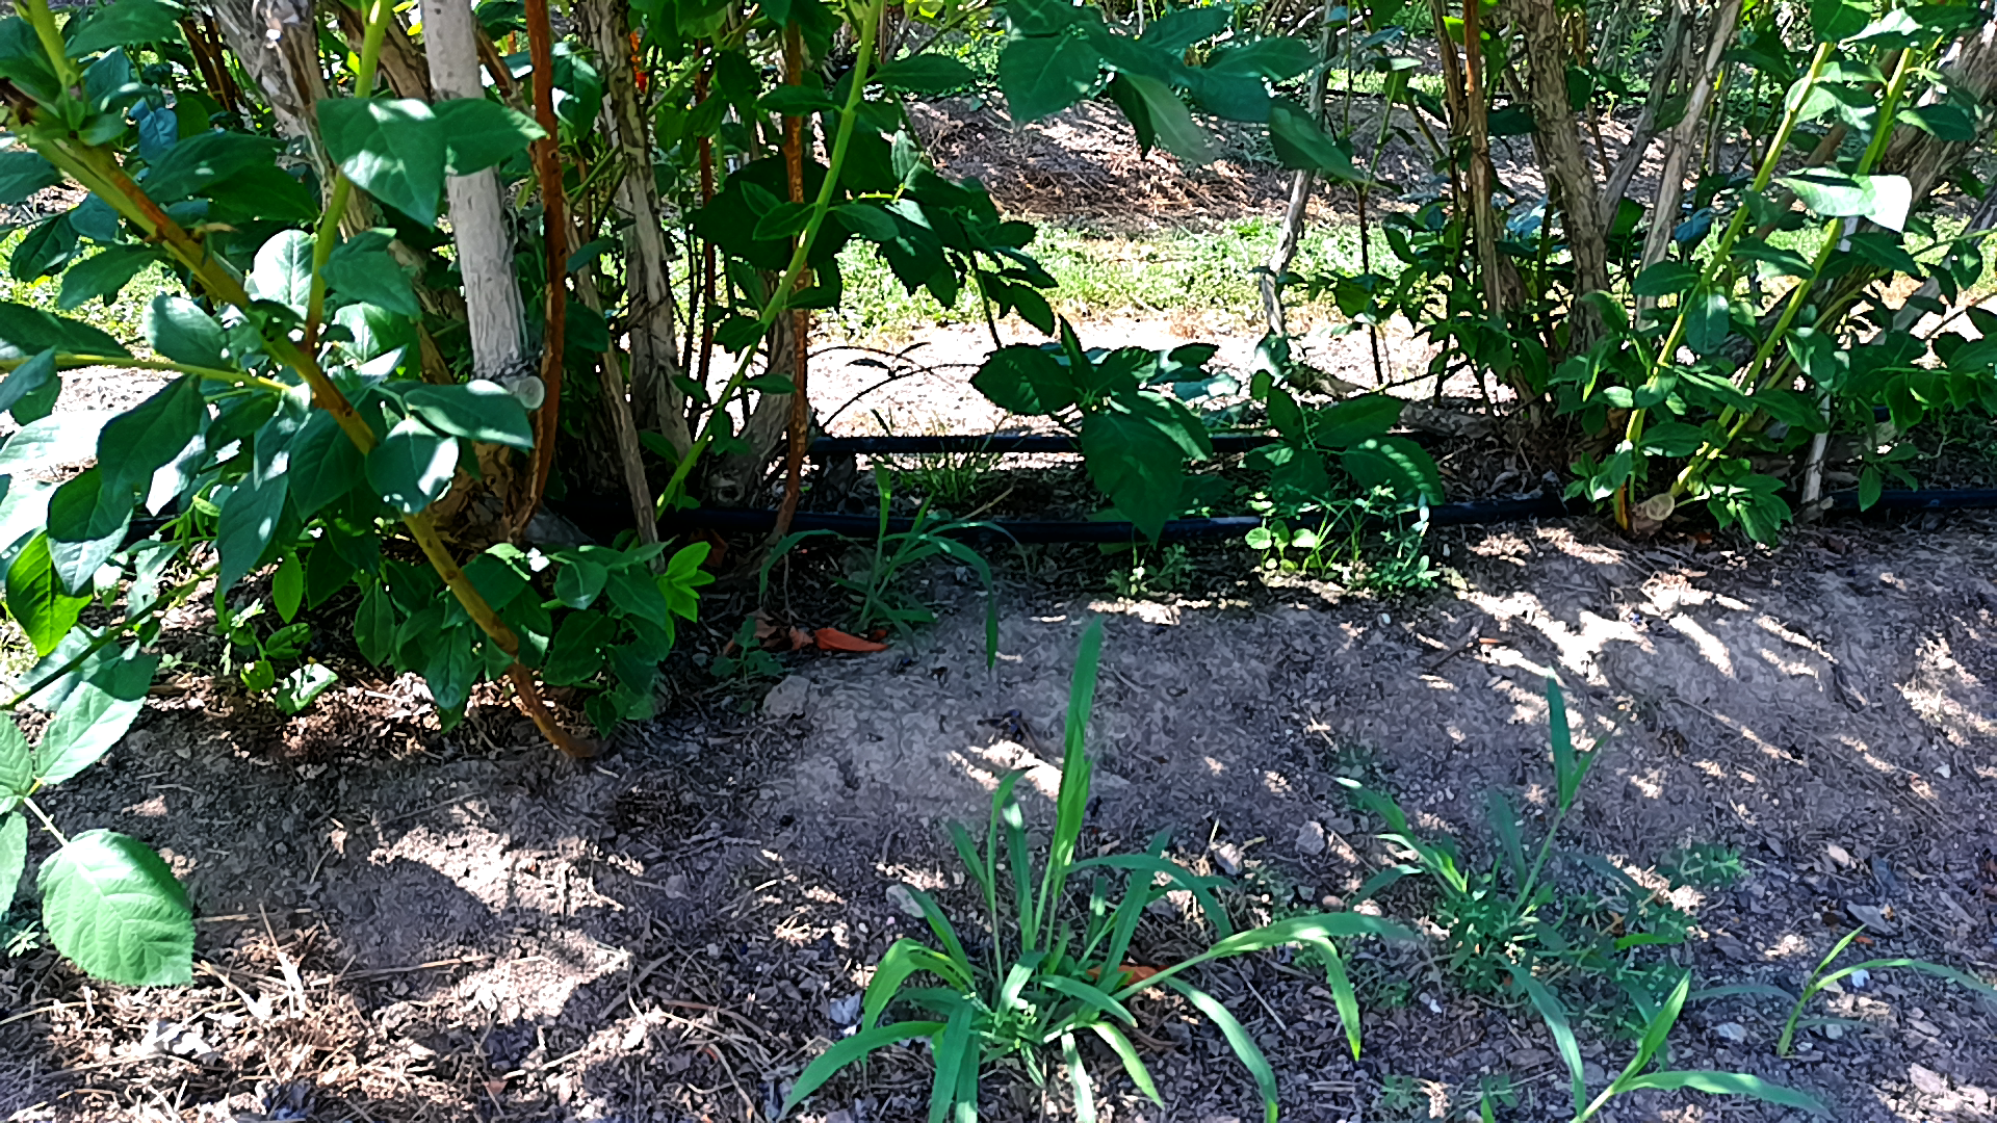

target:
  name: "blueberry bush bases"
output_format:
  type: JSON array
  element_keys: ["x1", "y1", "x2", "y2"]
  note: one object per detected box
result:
[
  {"x1": 1341, "y1": 183, "x2": 1922, "y2": 662},
  {"x1": 134, "y1": 145, "x2": 887, "y2": 860}
]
